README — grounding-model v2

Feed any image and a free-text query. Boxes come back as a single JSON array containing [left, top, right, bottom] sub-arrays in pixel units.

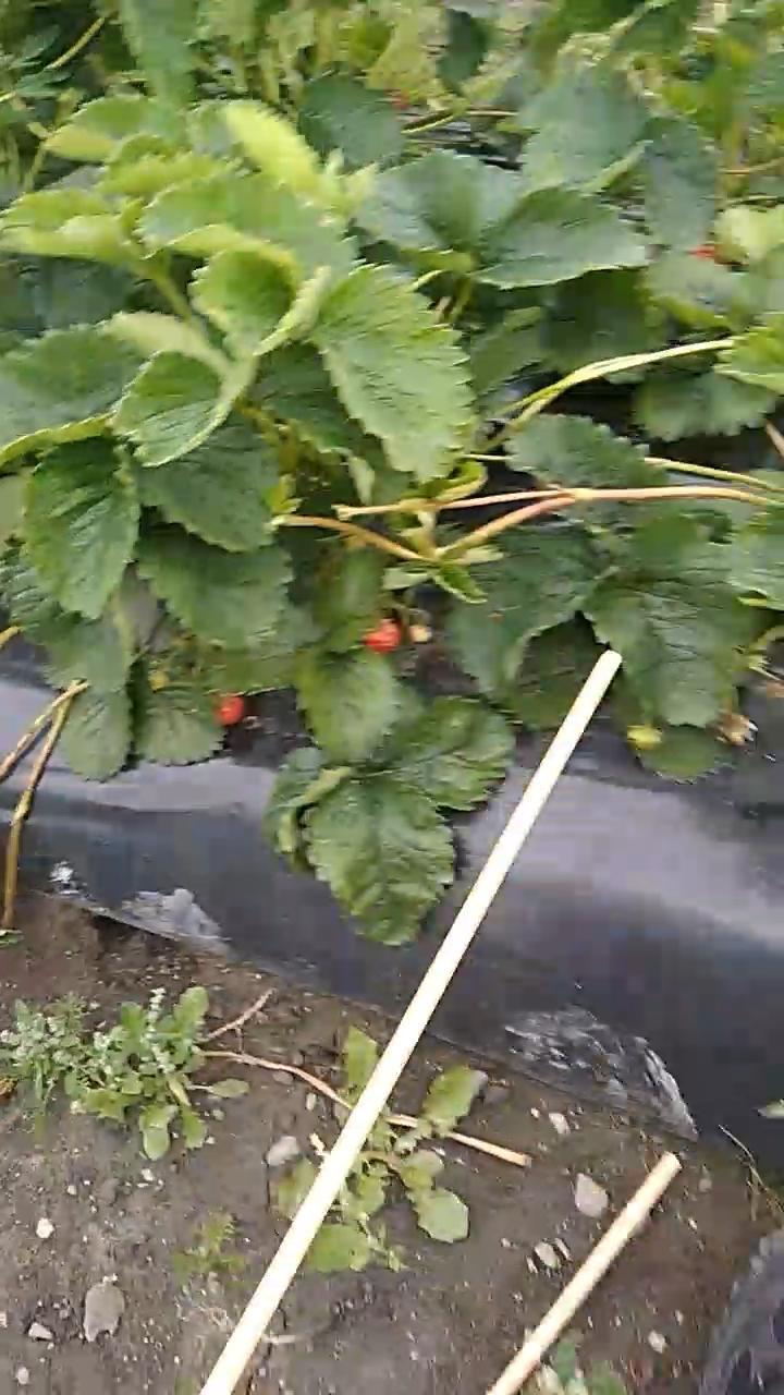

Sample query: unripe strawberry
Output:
[[624, 721, 657, 755]]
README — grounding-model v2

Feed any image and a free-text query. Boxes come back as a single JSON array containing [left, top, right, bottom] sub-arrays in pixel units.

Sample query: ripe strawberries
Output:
[[217, 697, 242, 733], [367, 616, 401, 653]]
